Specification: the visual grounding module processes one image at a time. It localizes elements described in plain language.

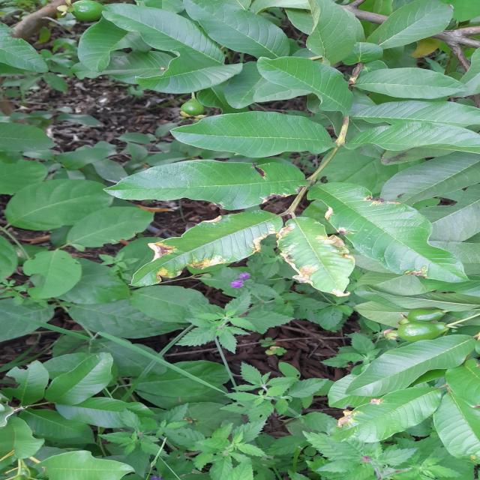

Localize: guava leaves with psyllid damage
[113,200,279,292]
[299,173,476,287]
[280,210,361,302]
